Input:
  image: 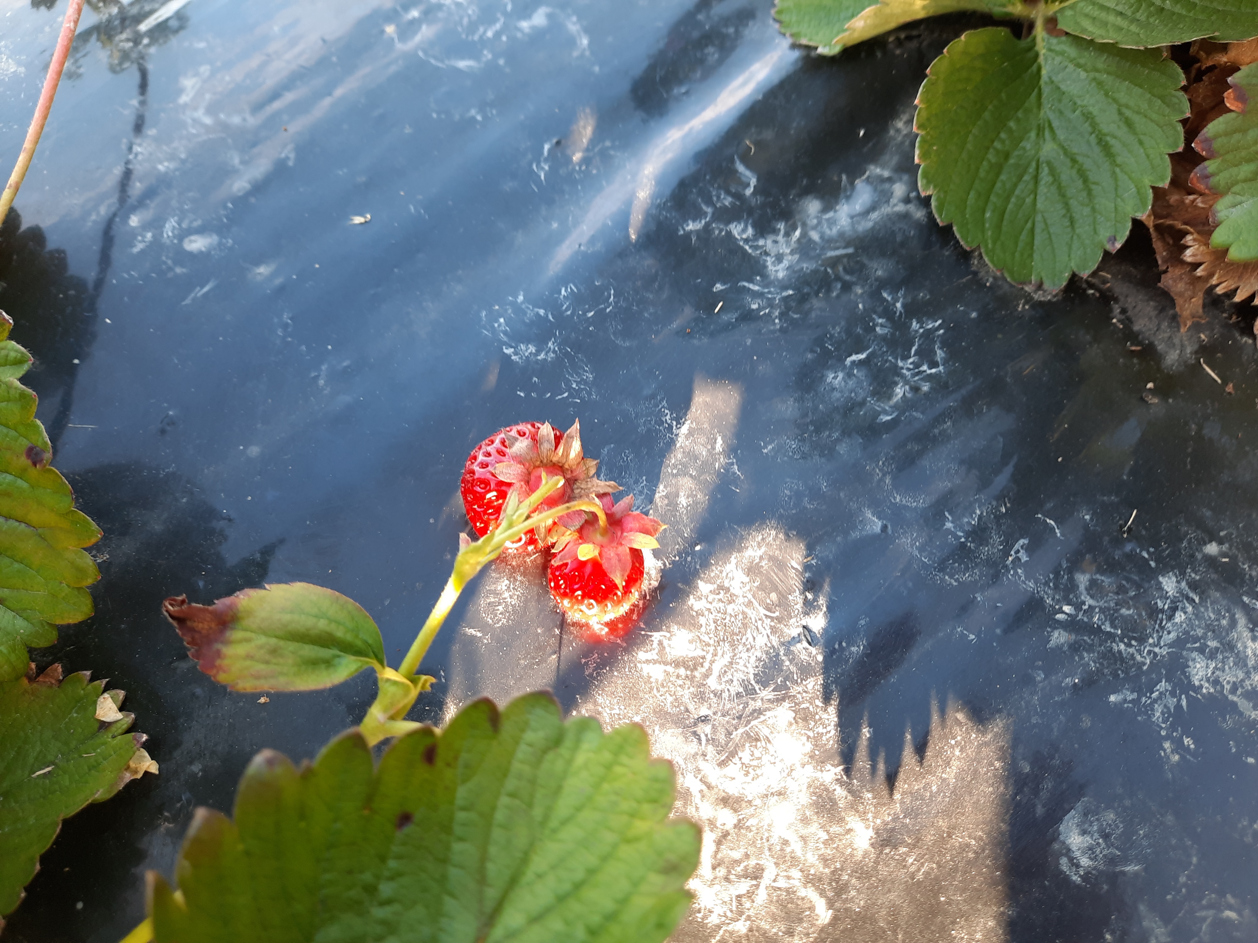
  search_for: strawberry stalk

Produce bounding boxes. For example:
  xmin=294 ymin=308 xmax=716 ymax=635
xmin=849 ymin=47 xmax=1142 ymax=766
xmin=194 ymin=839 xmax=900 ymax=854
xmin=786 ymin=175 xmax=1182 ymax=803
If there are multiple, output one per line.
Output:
xmin=498 ymin=490 xmax=619 ymax=562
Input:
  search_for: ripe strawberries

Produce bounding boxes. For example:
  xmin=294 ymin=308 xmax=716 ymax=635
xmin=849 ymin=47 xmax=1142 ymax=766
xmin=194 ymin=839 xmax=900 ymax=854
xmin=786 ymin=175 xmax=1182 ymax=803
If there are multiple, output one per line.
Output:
xmin=467 ymin=433 xmax=599 ymax=546
xmin=556 ymin=512 xmax=644 ymax=624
